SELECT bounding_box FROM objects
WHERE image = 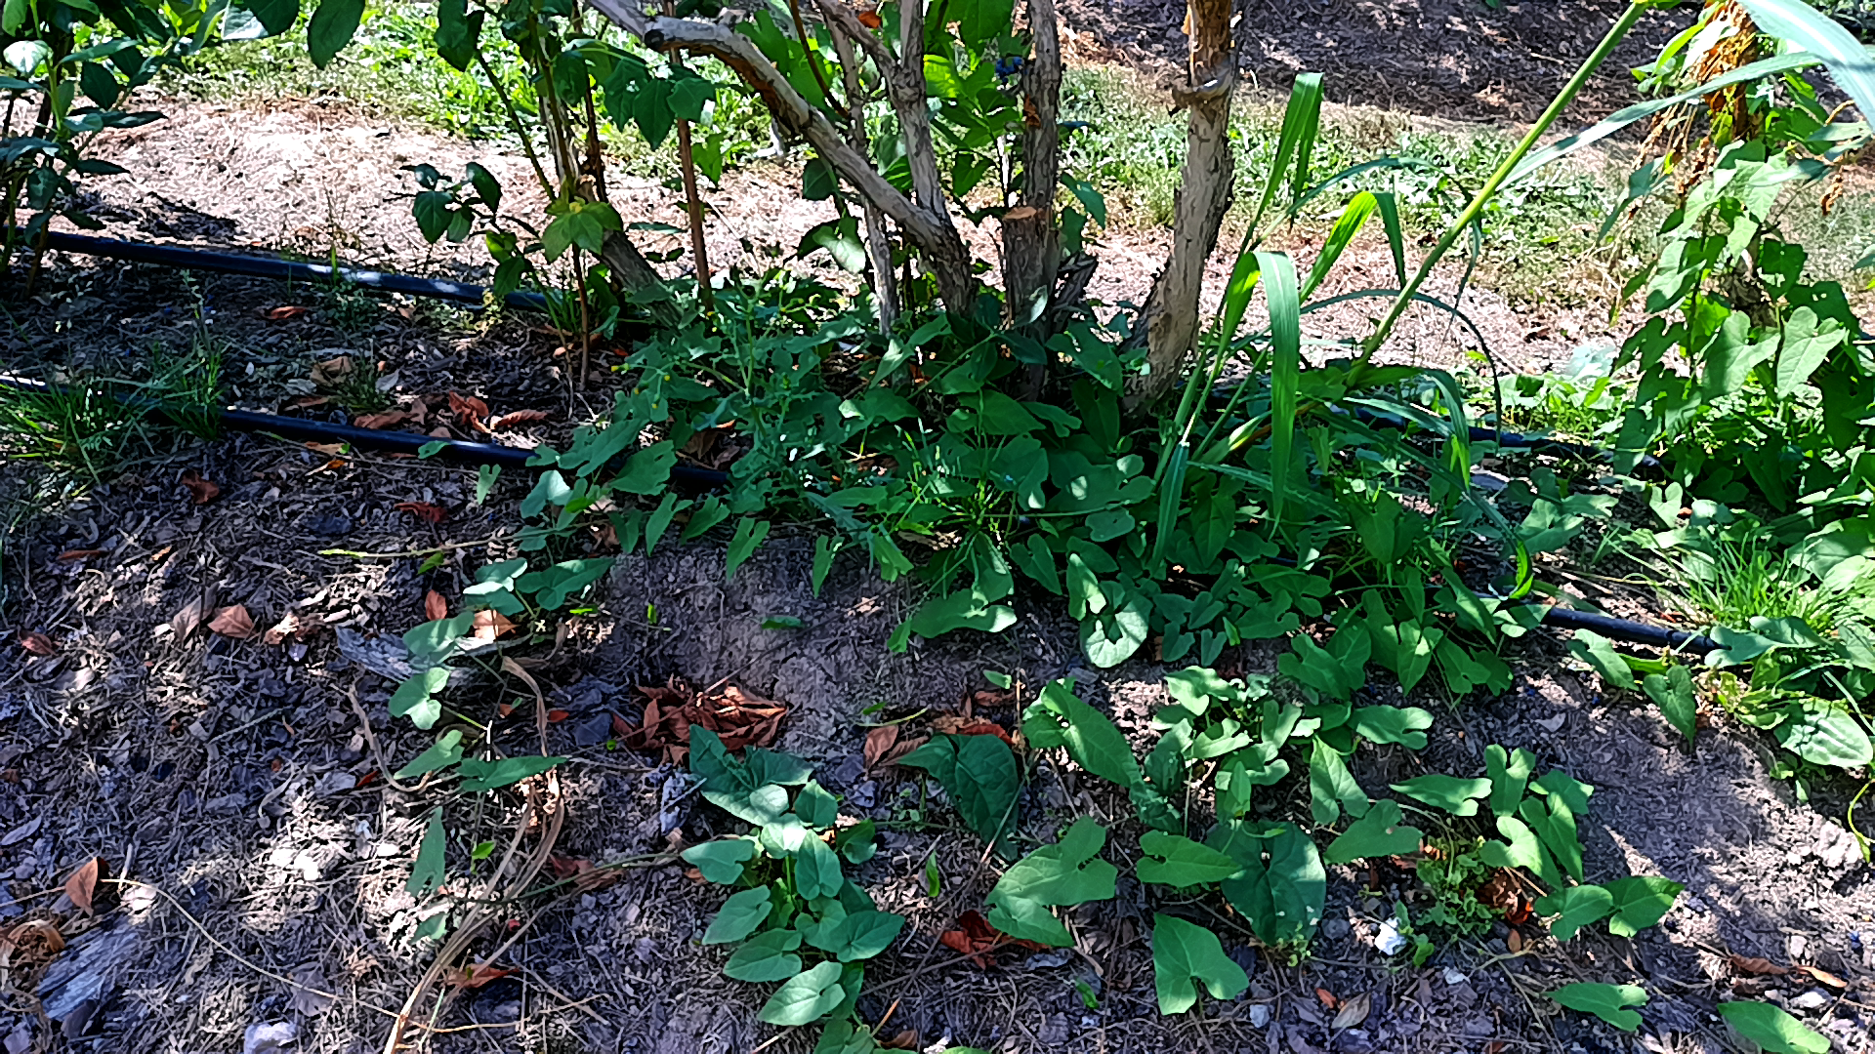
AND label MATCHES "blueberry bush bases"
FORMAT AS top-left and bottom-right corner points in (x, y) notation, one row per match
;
(639, 170), (1334, 672)
(0, 92), (95, 359)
